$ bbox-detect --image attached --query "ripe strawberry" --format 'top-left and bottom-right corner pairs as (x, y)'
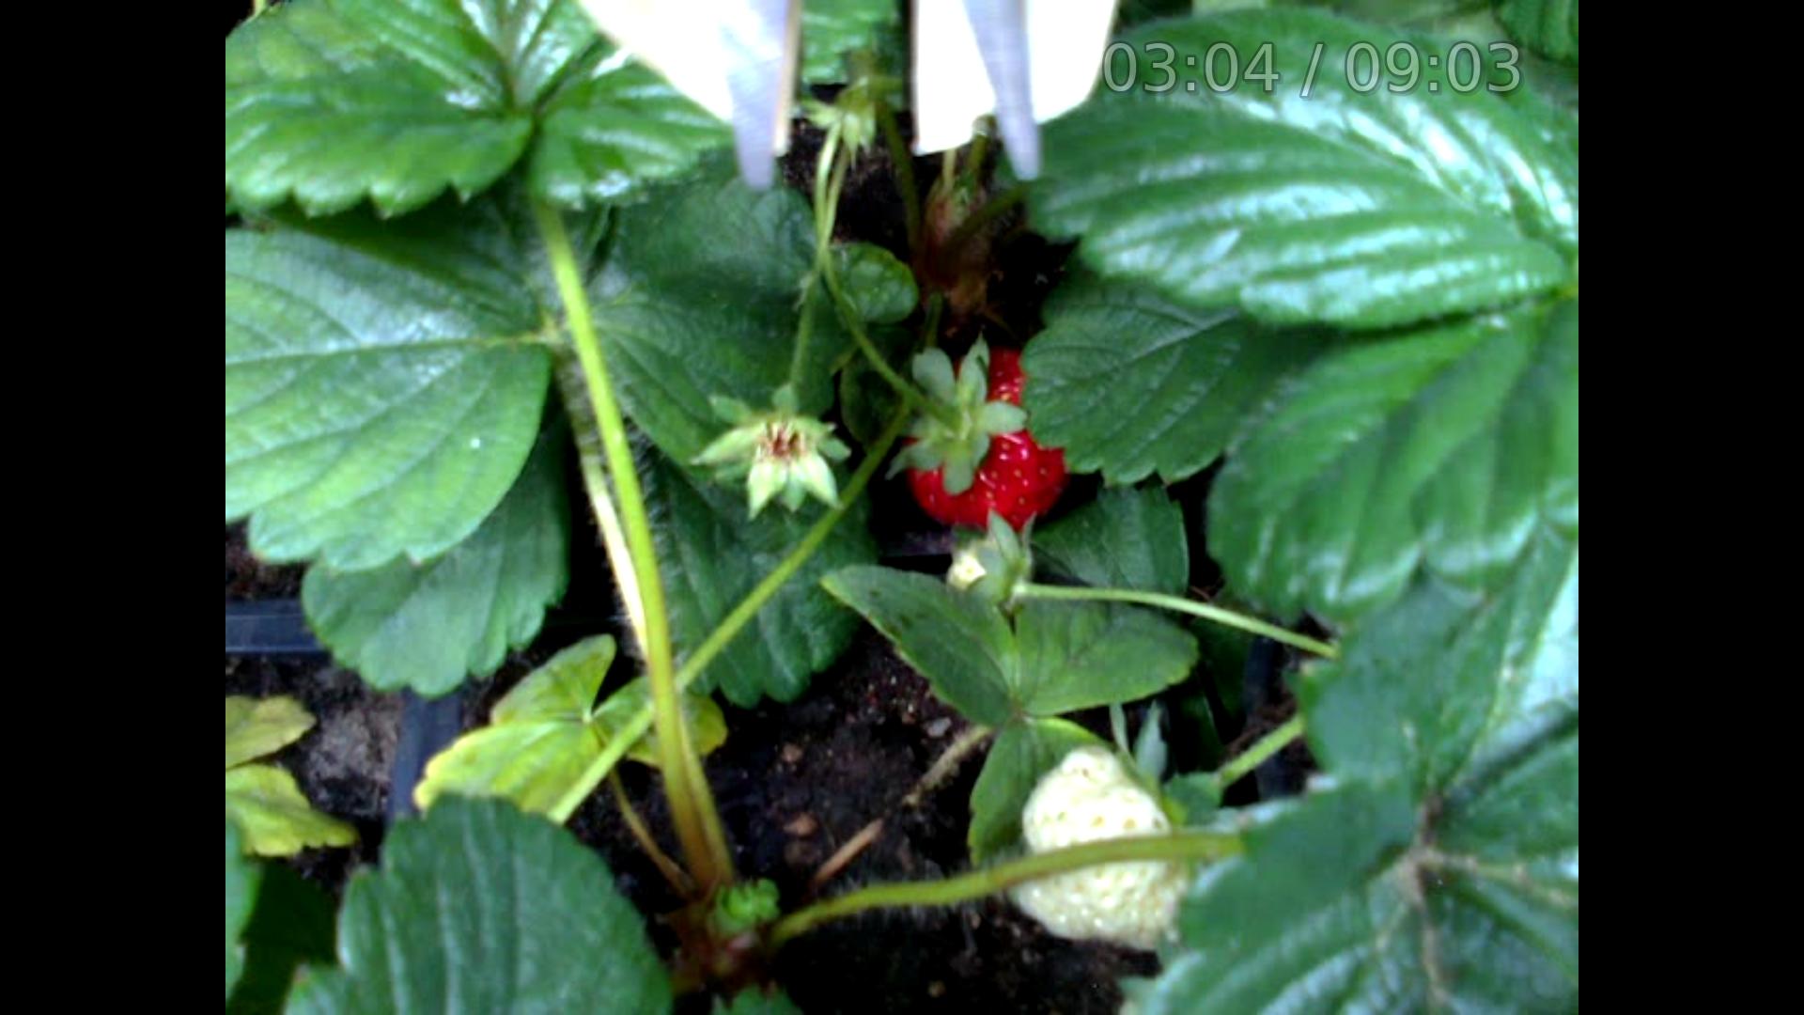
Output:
(890, 340), (1098, 520)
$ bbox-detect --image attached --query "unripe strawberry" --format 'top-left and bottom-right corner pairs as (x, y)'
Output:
(977, 732), (1200, 955)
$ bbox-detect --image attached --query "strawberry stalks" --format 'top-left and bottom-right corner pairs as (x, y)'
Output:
(1143, 708), (1288, 829)
(842, 267), (976, 449)
(754, 305), (813, 450)
(998, 547), (1137, 620)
